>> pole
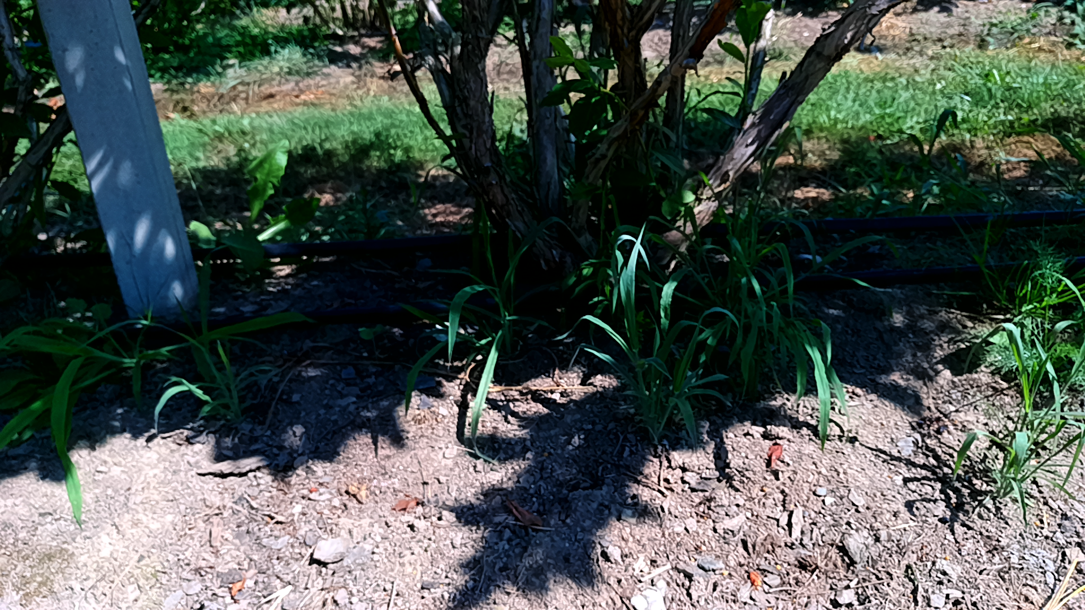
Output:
[31,1,221,365]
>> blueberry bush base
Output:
[404,47,827,410]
